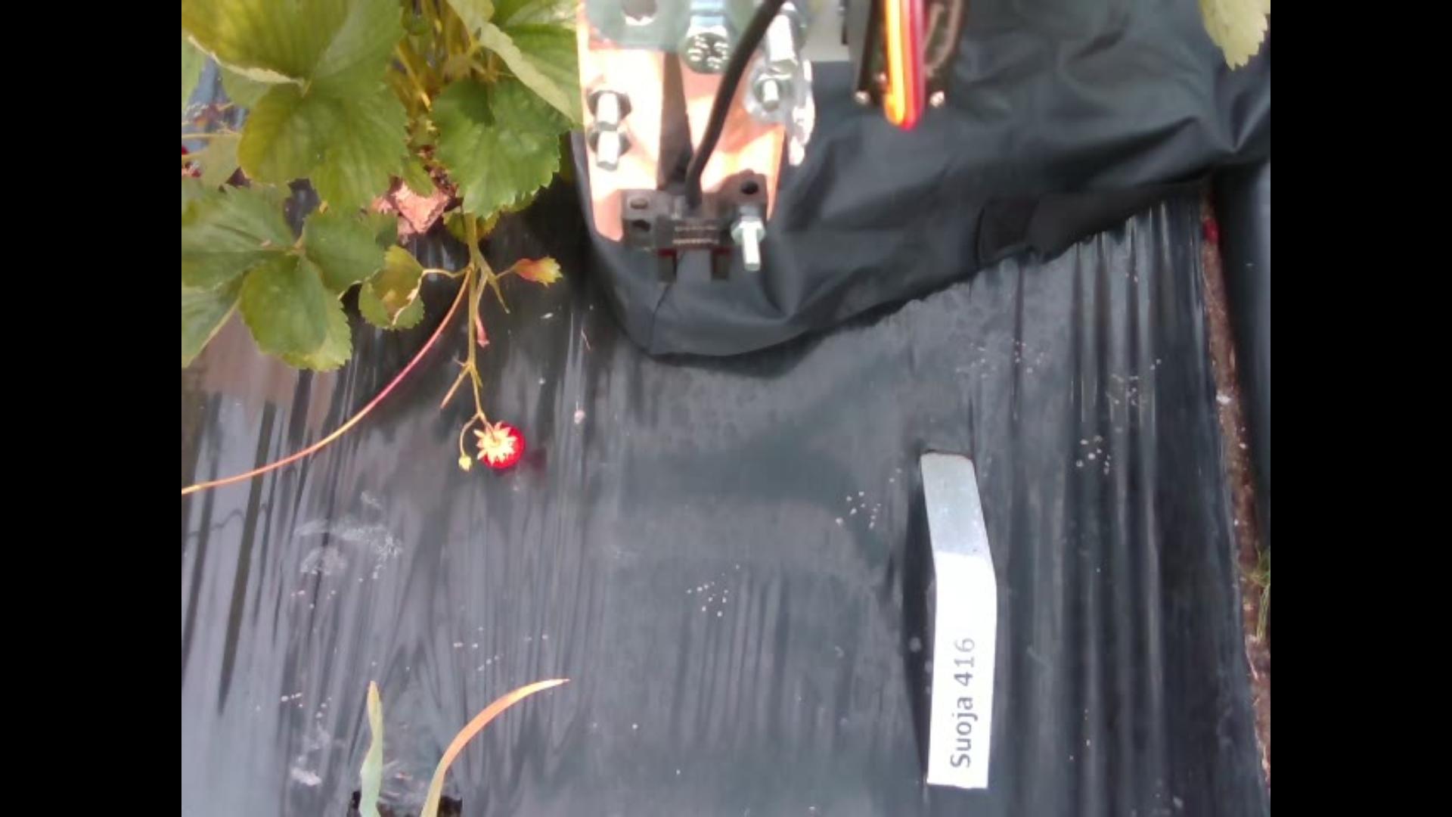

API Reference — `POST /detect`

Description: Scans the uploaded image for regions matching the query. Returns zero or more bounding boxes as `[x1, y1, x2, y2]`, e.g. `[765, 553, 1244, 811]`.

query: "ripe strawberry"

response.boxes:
[467, 415, 546, 478]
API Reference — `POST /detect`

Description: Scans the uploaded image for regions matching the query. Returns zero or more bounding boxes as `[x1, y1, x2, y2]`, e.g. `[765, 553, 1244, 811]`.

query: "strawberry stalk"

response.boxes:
[466, 373, 501, 445]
